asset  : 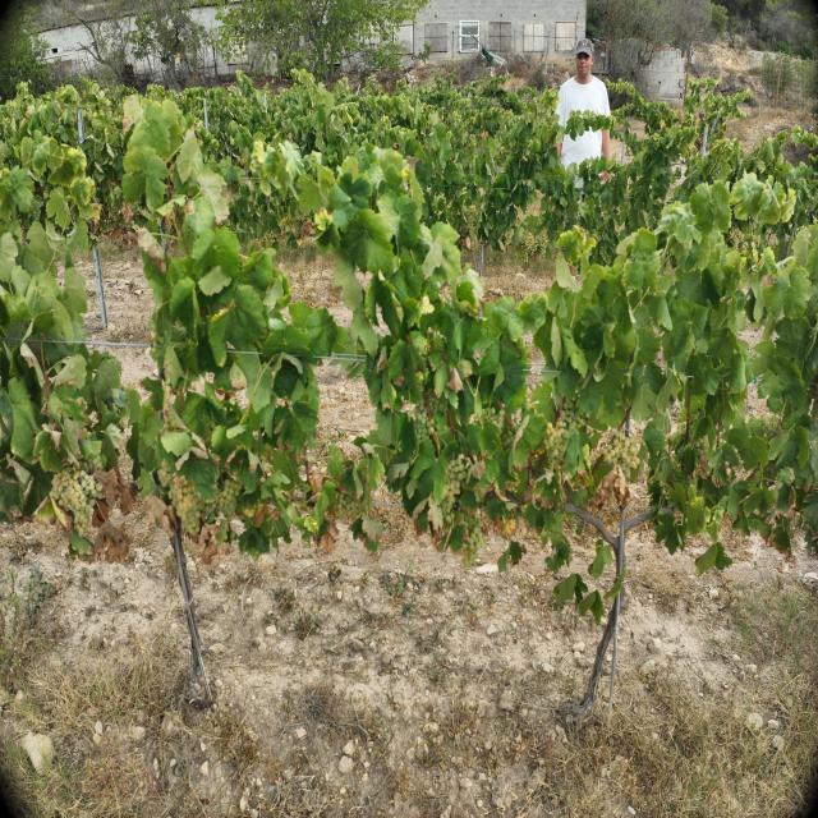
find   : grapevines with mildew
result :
[0,188,349,736]
[348,190,818,731]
